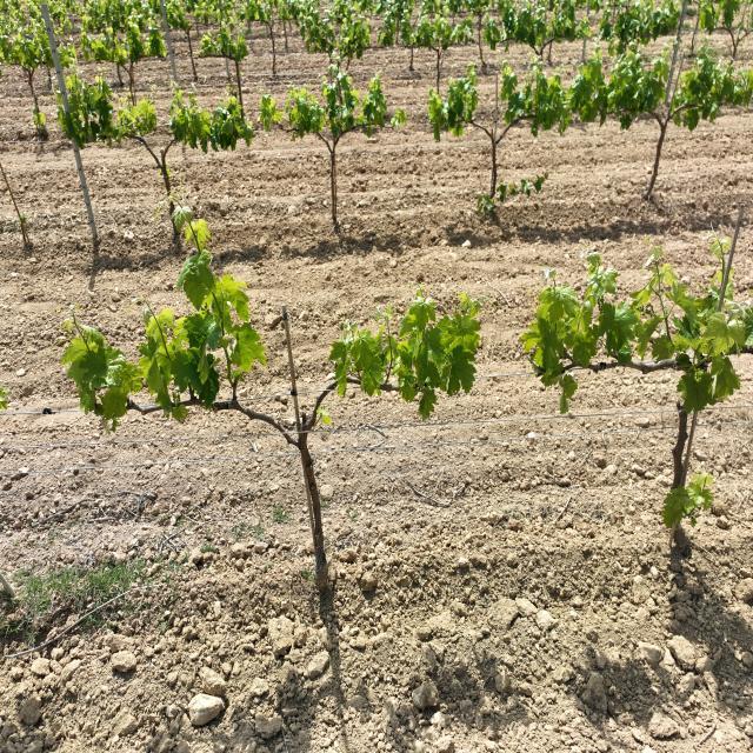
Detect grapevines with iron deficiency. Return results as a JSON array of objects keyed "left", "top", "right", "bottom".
[
  {"left": 54, "top": 235, "right": 495, "bottom": 629},
  {"left": 518, "top": 254, "right": 753, "bottom": 565}
]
